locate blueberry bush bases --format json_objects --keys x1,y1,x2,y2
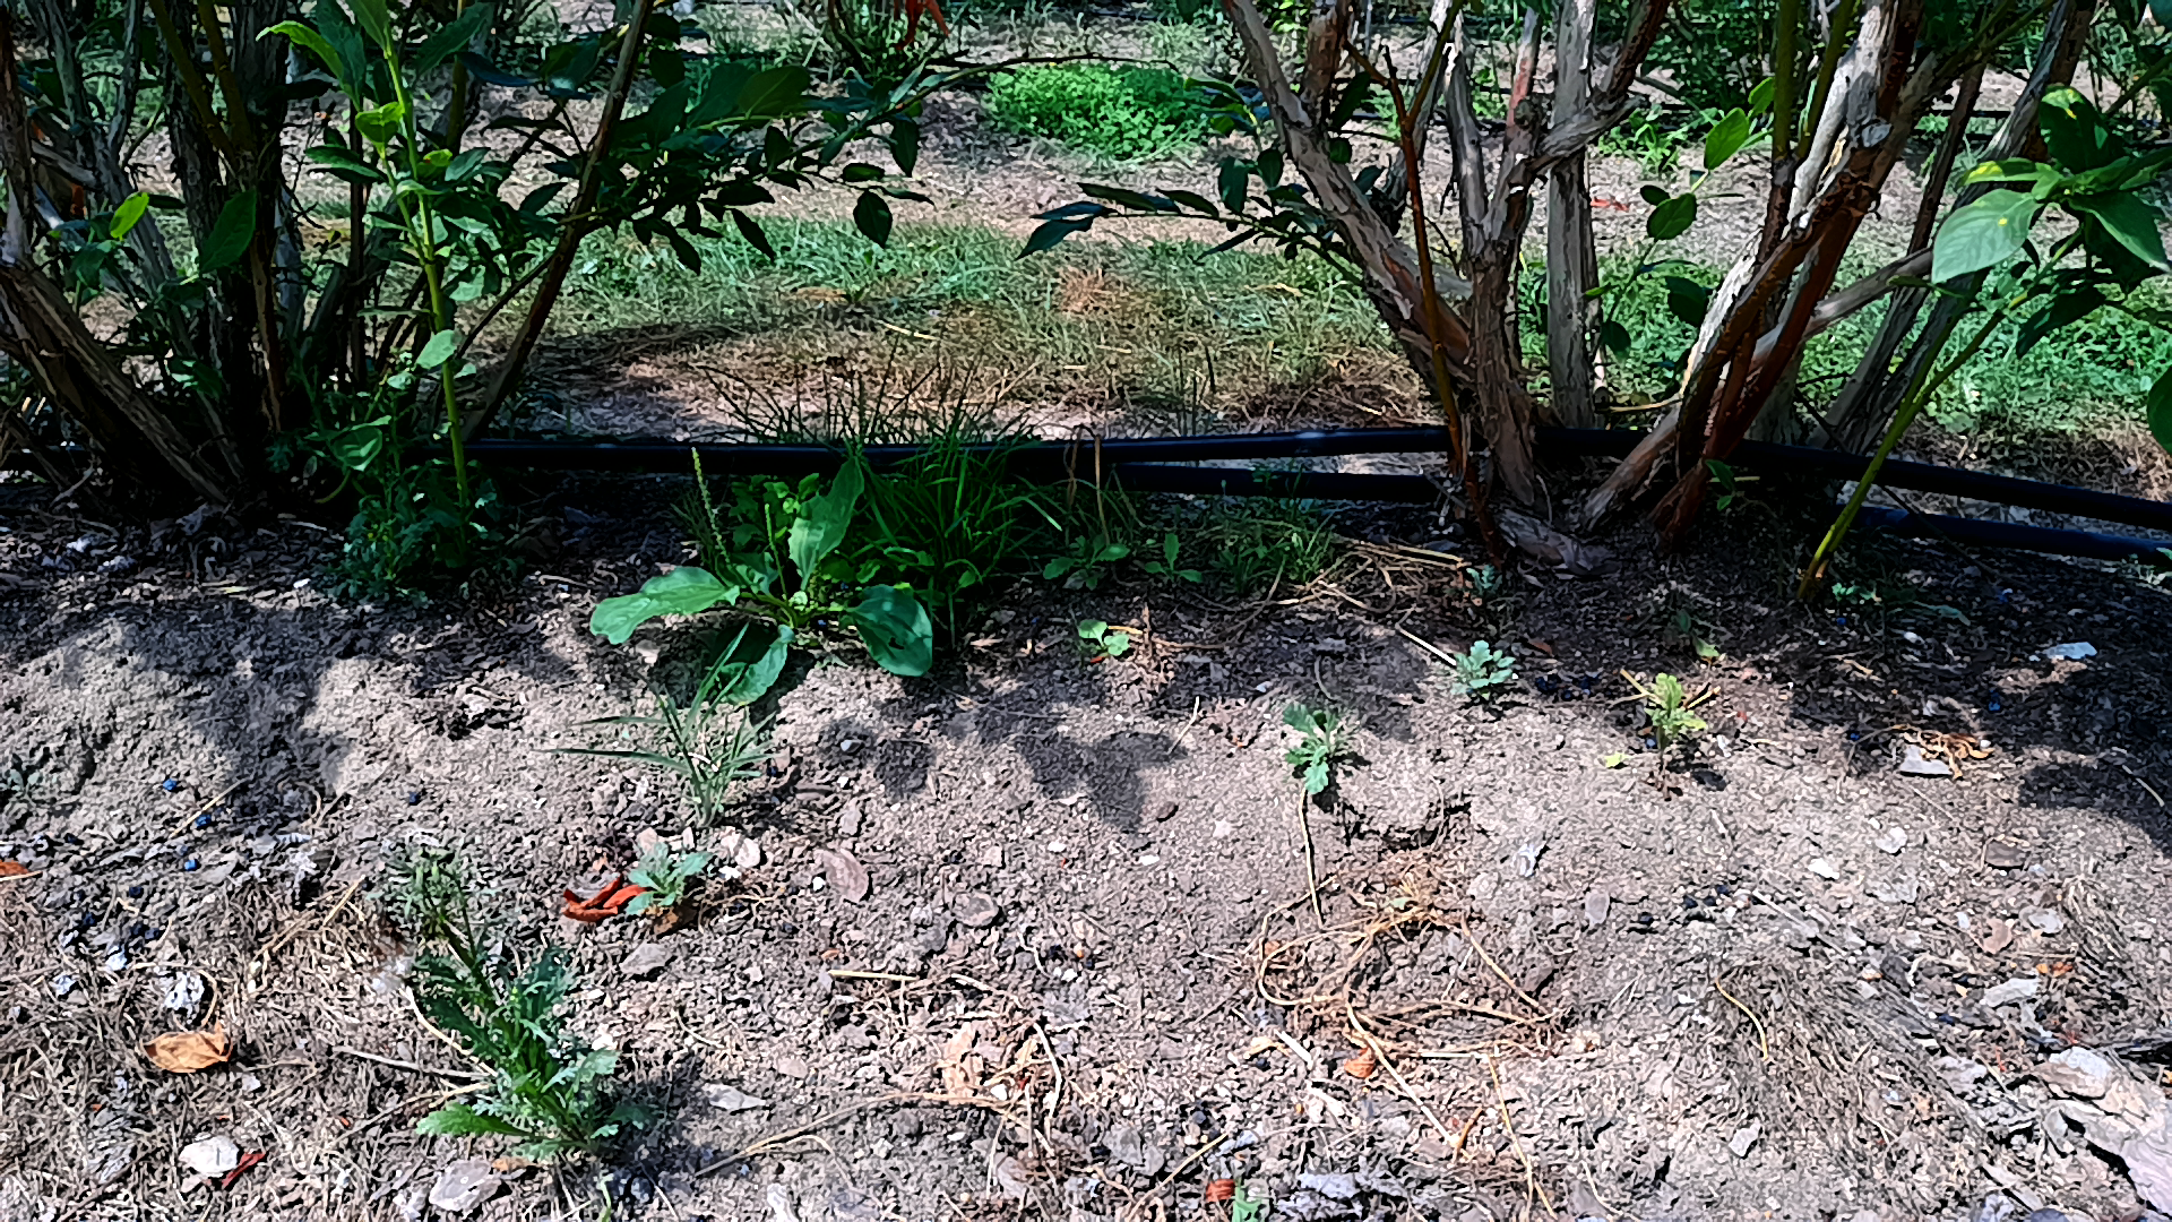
[
  {"x1": 1337, "y1": 171, "x2": 1991, "y2": 636},
  {"x1": 8, "y1": 238, "x2": 549, "y2": 597}
]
